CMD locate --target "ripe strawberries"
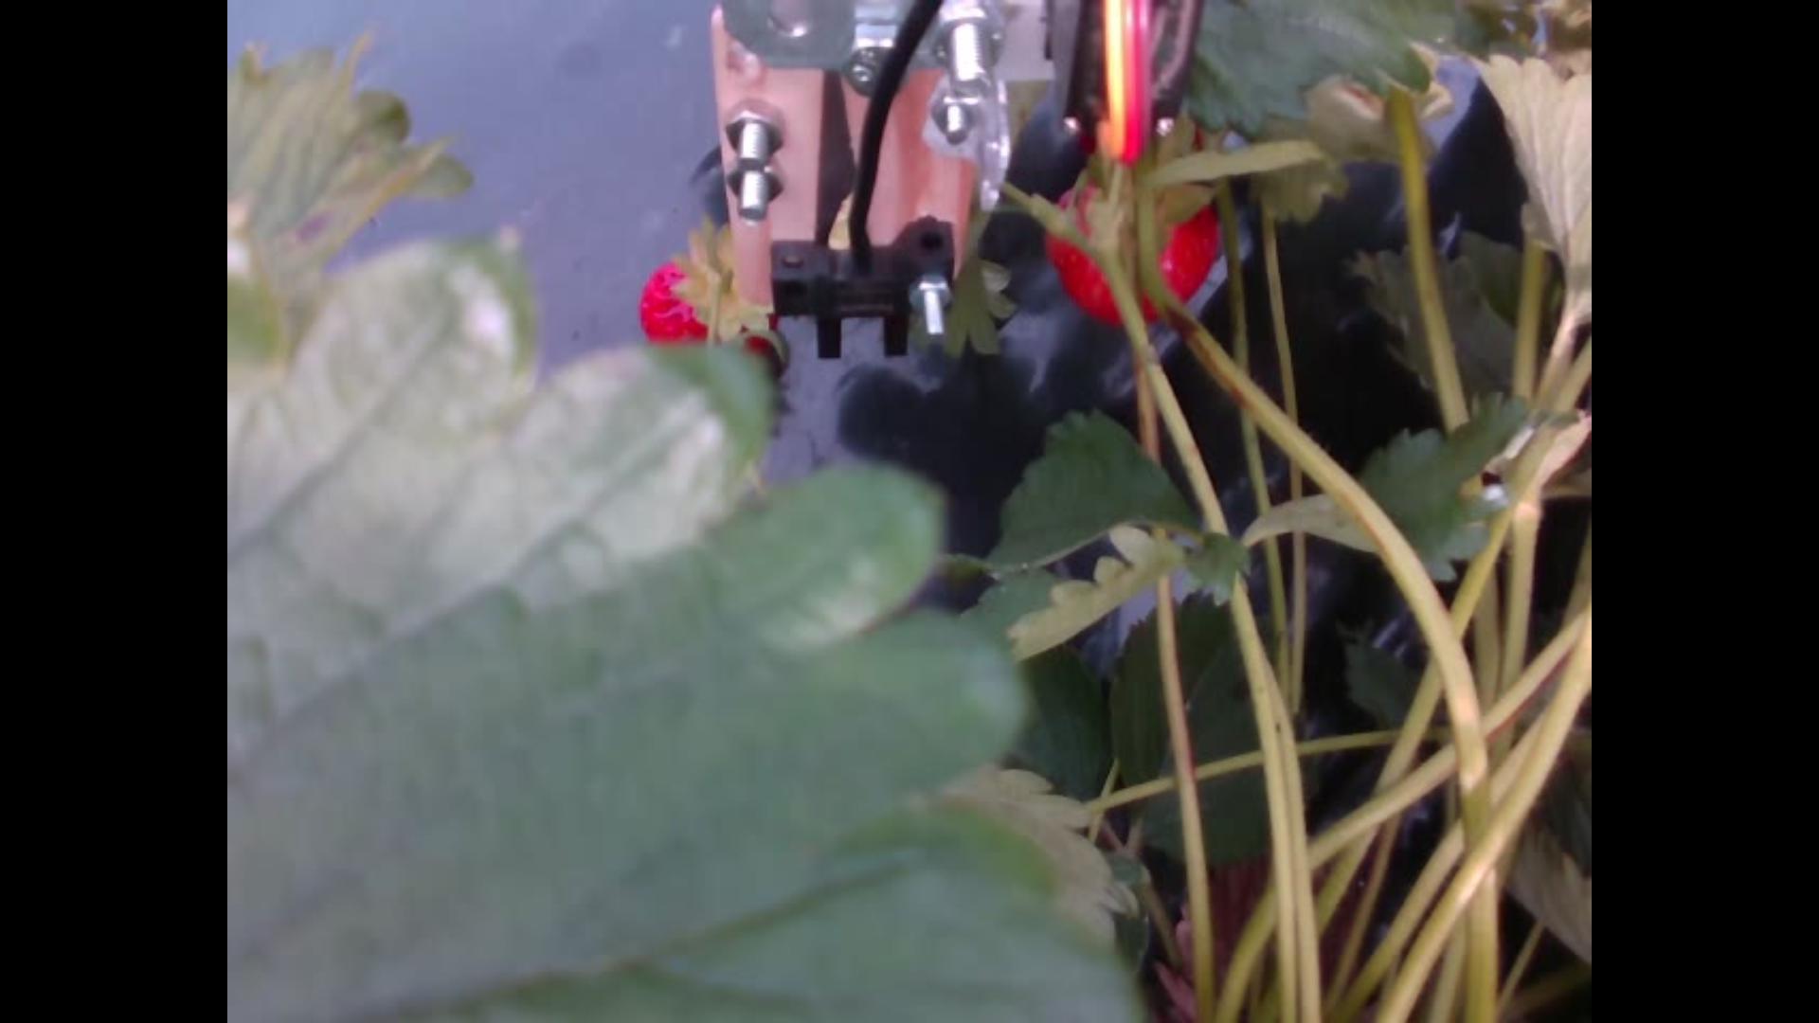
[637,254,773,379]
[1043,142,1231,332]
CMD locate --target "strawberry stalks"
[696,274,749,354]
[1089,153,1176,230]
